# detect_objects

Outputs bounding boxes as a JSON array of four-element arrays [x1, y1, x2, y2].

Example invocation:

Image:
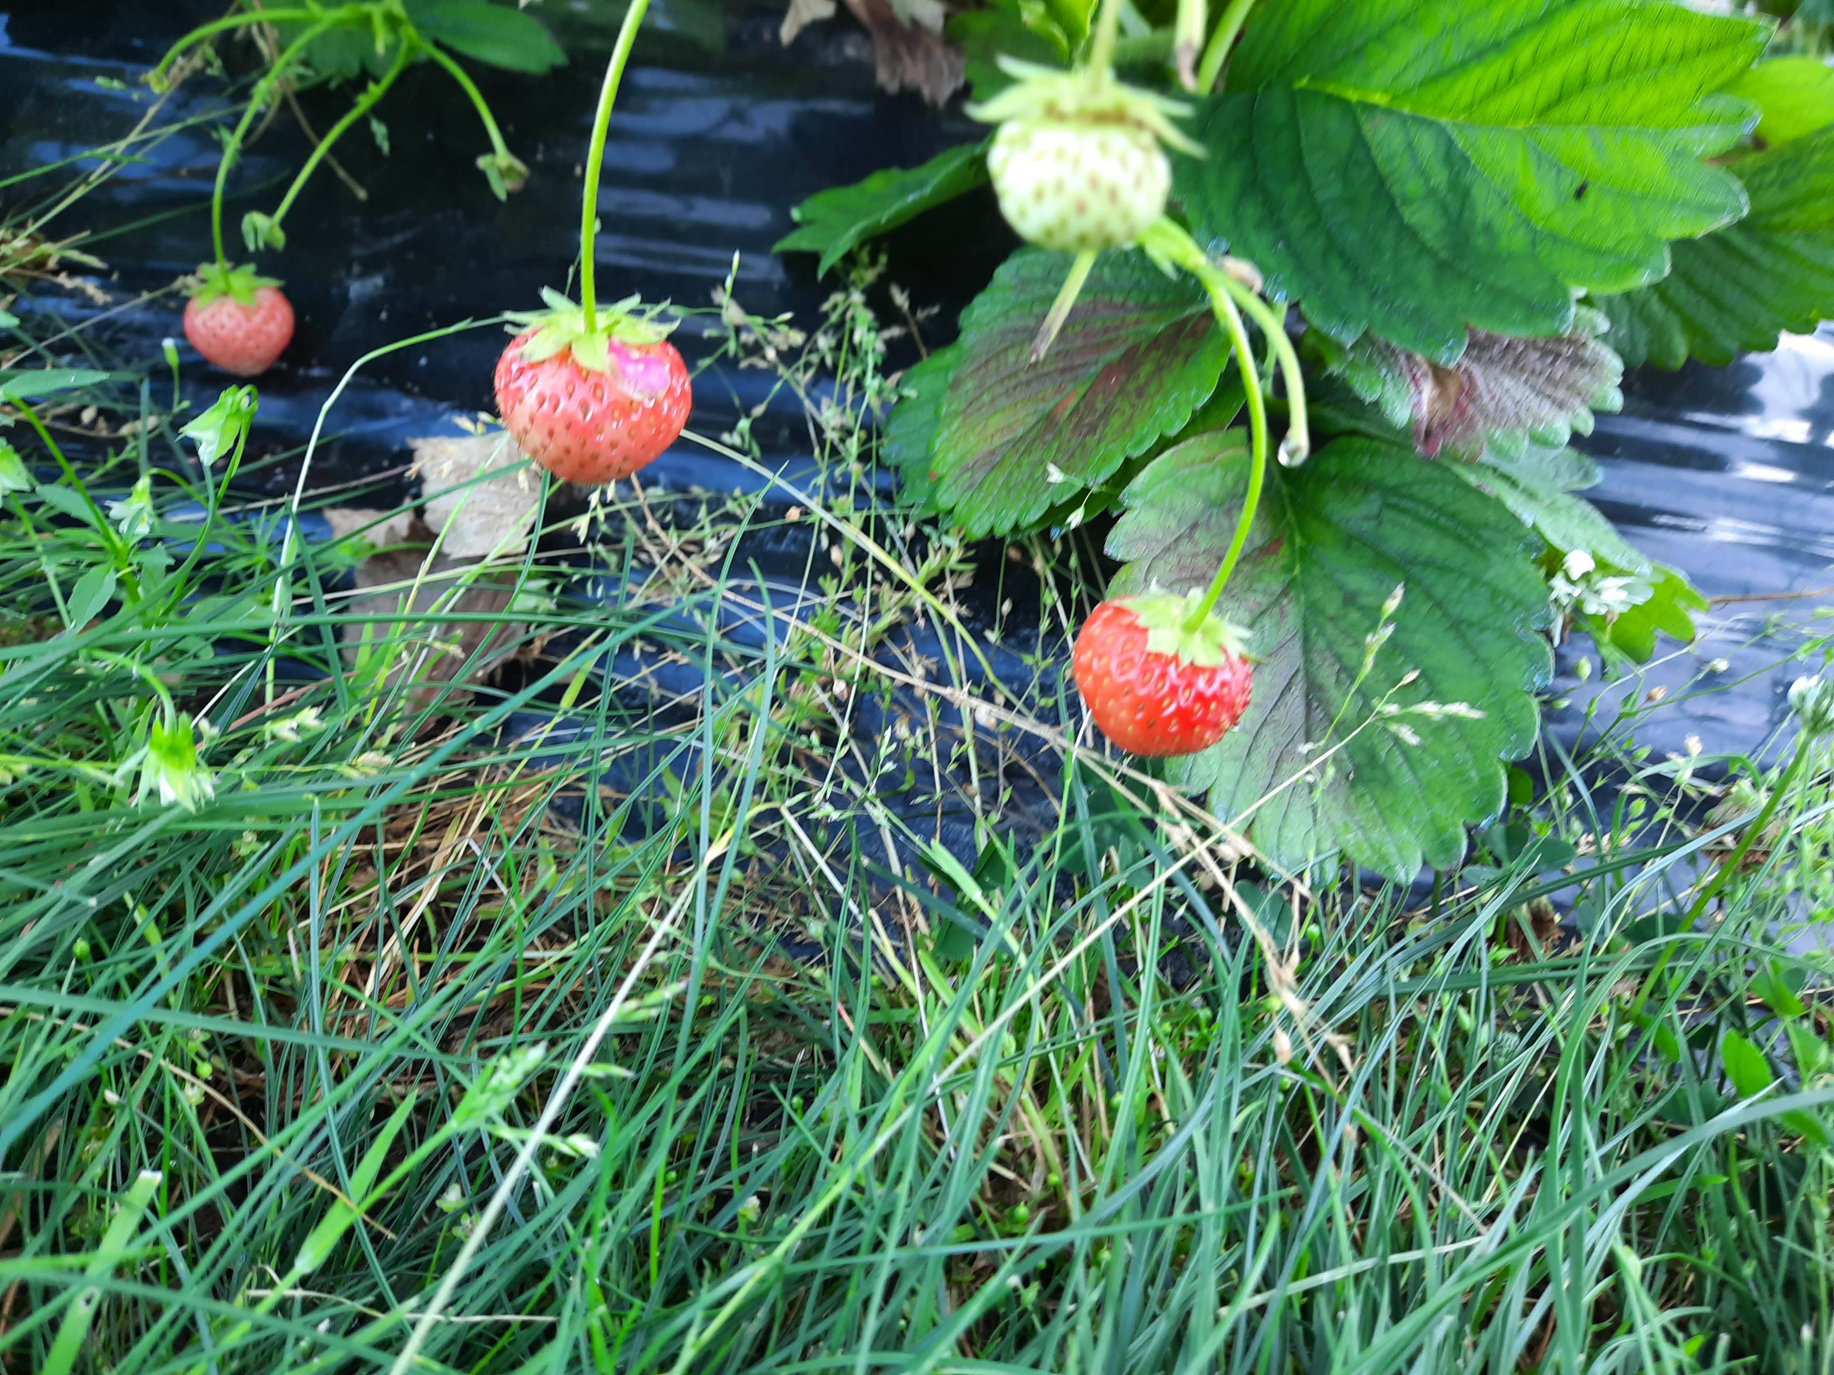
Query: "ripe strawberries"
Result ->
[[1064, 610, 1255, 747], [506, 304, 691, 483], [189, 279, 309, 372]]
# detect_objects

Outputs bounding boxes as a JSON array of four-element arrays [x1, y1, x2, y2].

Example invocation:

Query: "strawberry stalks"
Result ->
[[576, 46, 620, 383], [1162, 299, 1272, 660], [206, 110, 251, 316]]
